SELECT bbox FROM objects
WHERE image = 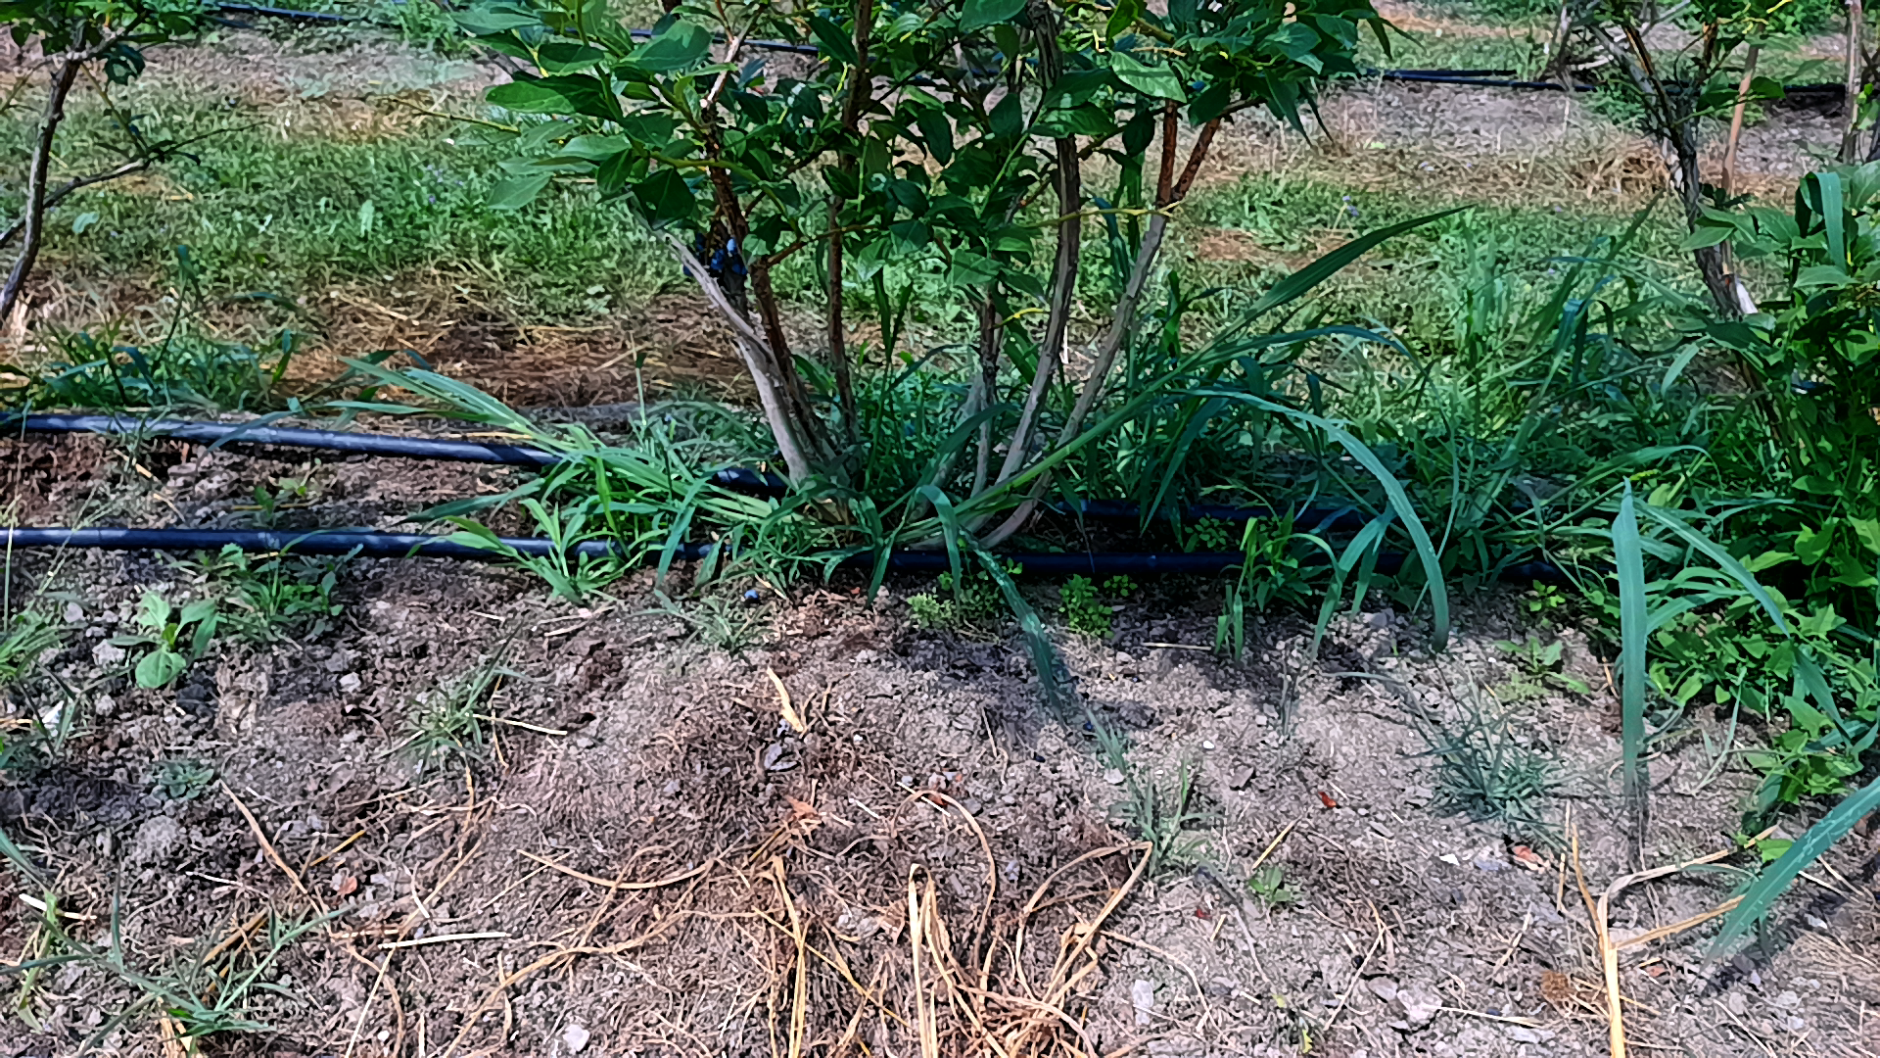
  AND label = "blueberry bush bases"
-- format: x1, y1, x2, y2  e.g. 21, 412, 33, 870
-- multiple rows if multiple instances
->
1641, 172, 1880, 613
691, 300, 1205, 633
